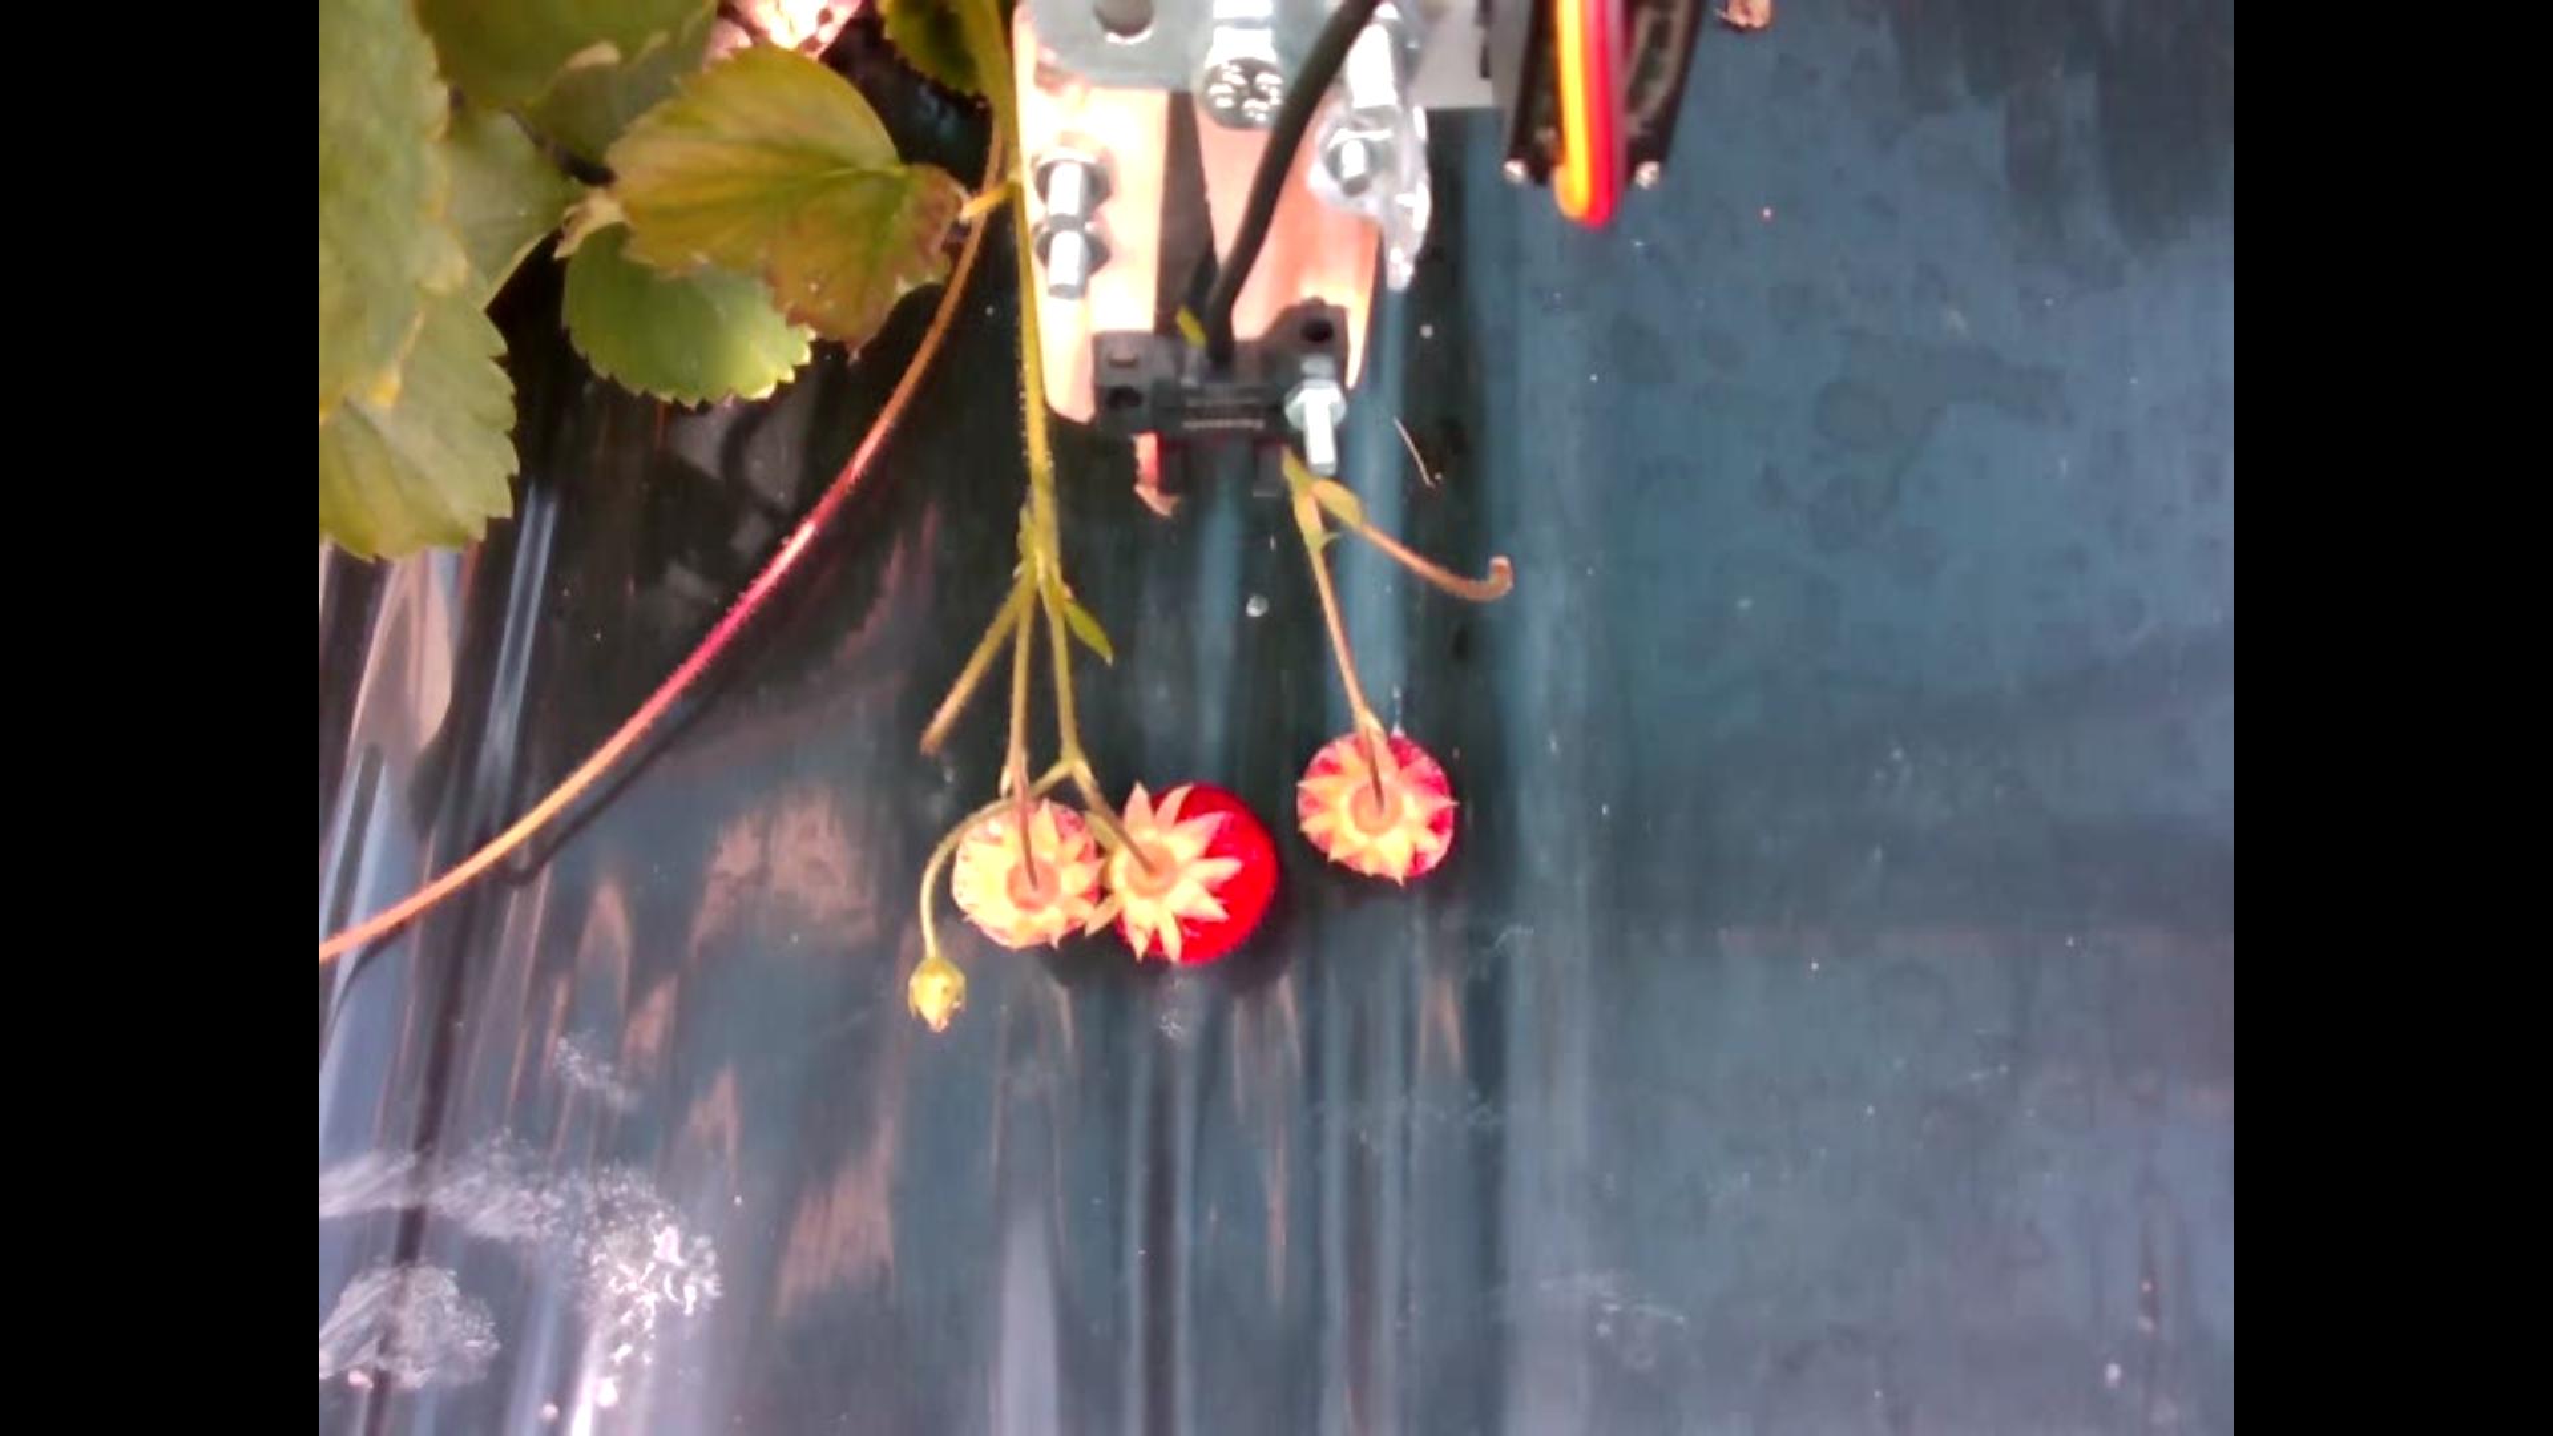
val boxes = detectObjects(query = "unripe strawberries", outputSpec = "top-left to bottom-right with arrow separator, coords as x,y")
1295,709 -> 1461,891
952,796 -> 1105,959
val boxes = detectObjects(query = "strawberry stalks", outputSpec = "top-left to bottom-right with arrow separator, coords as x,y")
1065,740 -> 1165,868
1320,658 -> 1399,805
999,683 -> 1046,858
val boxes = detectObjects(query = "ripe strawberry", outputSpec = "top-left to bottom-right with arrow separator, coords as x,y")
1115,785 -> 1290,970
